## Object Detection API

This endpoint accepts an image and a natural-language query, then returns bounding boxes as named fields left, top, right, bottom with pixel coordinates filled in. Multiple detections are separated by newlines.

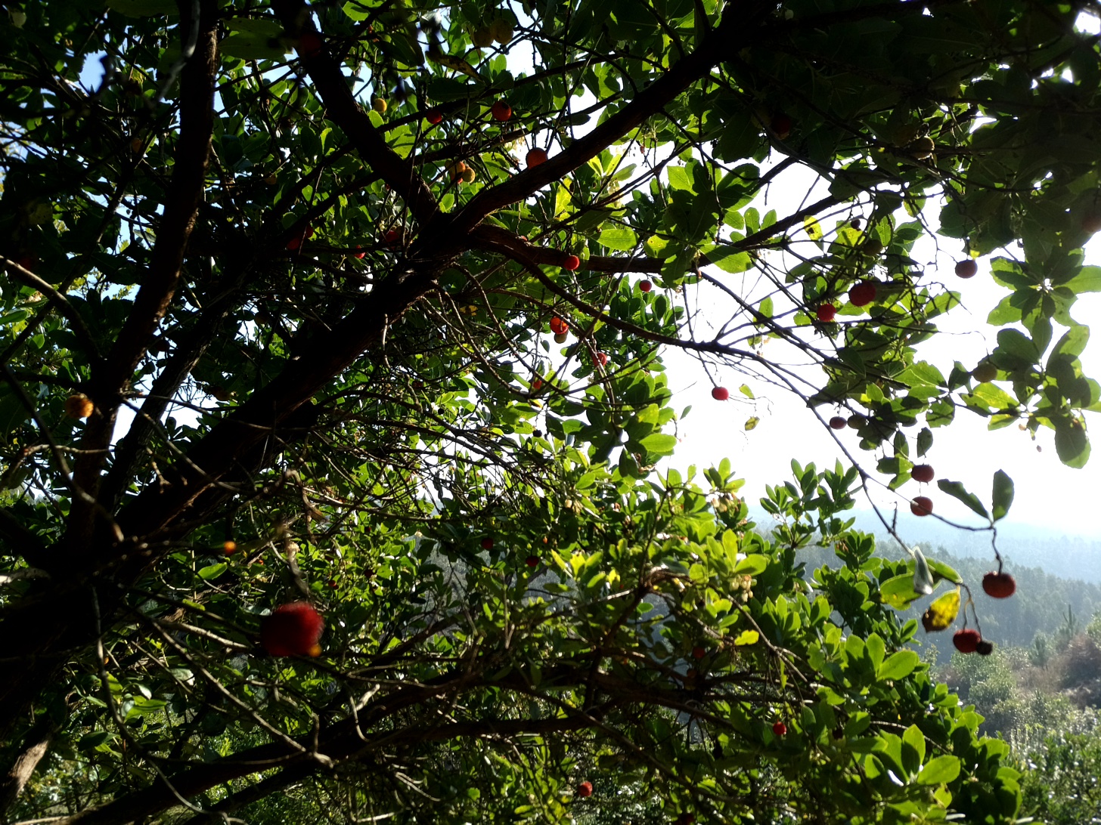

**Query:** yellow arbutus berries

left=372, top=97, right=387, bottom=112
left=66, top=392, right=94, bottom=418
left=451, top=162, right=465, bottom=173
left=463, top=167, right=476, bottom=184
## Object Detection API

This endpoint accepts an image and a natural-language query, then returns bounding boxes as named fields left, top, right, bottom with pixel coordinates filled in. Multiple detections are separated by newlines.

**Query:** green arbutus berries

left=972, top=363, right=997, bottom=382
left=554, top=334, right=568, bottom=344
left=847, top=414, right=865, bottom=429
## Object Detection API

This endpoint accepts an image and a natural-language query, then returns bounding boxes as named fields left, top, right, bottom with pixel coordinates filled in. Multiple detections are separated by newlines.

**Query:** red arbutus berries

left=531, top=378, right=544, bottom=392
left=711, top=386, right=729, bottom=401
left=829, top=416, right=847, bottom=429
left=350, top=241, right=366, bottom=258
left=451, top=172, right=463, bottom=184
left=524, top=147, right=548, bottom=169
left=849, top=284, right=871, bottom=306
left=526, top=555, right=540, bottom=568
left=817, top=304, right=836, bottom=321
left=911, top=463, right=935, bottom=483
left=259, top=597, right=324, bottom=660
left=982, top=571, right=1016, bottom=599
left=578, top=781, right=593, bottom=796
left=427, top=111, right=444, bottom=124
left=549, top=316, right=569, bottom=336
left=592, top=352, right=607, bottom=365
left=639, top=280, right=652, bottom=292
left=773, top=721, right=787, bottom=735
left=911, top=496, right=933, bottom=516
left=955, top=259, right=977, bottom=279
left=481, top=537, right=494, bottom=551
left=952, top=630, right=980, bottom=653
left=491, top=100, right=511, bottom=121
left=565, top=255, right=580, bottom=270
